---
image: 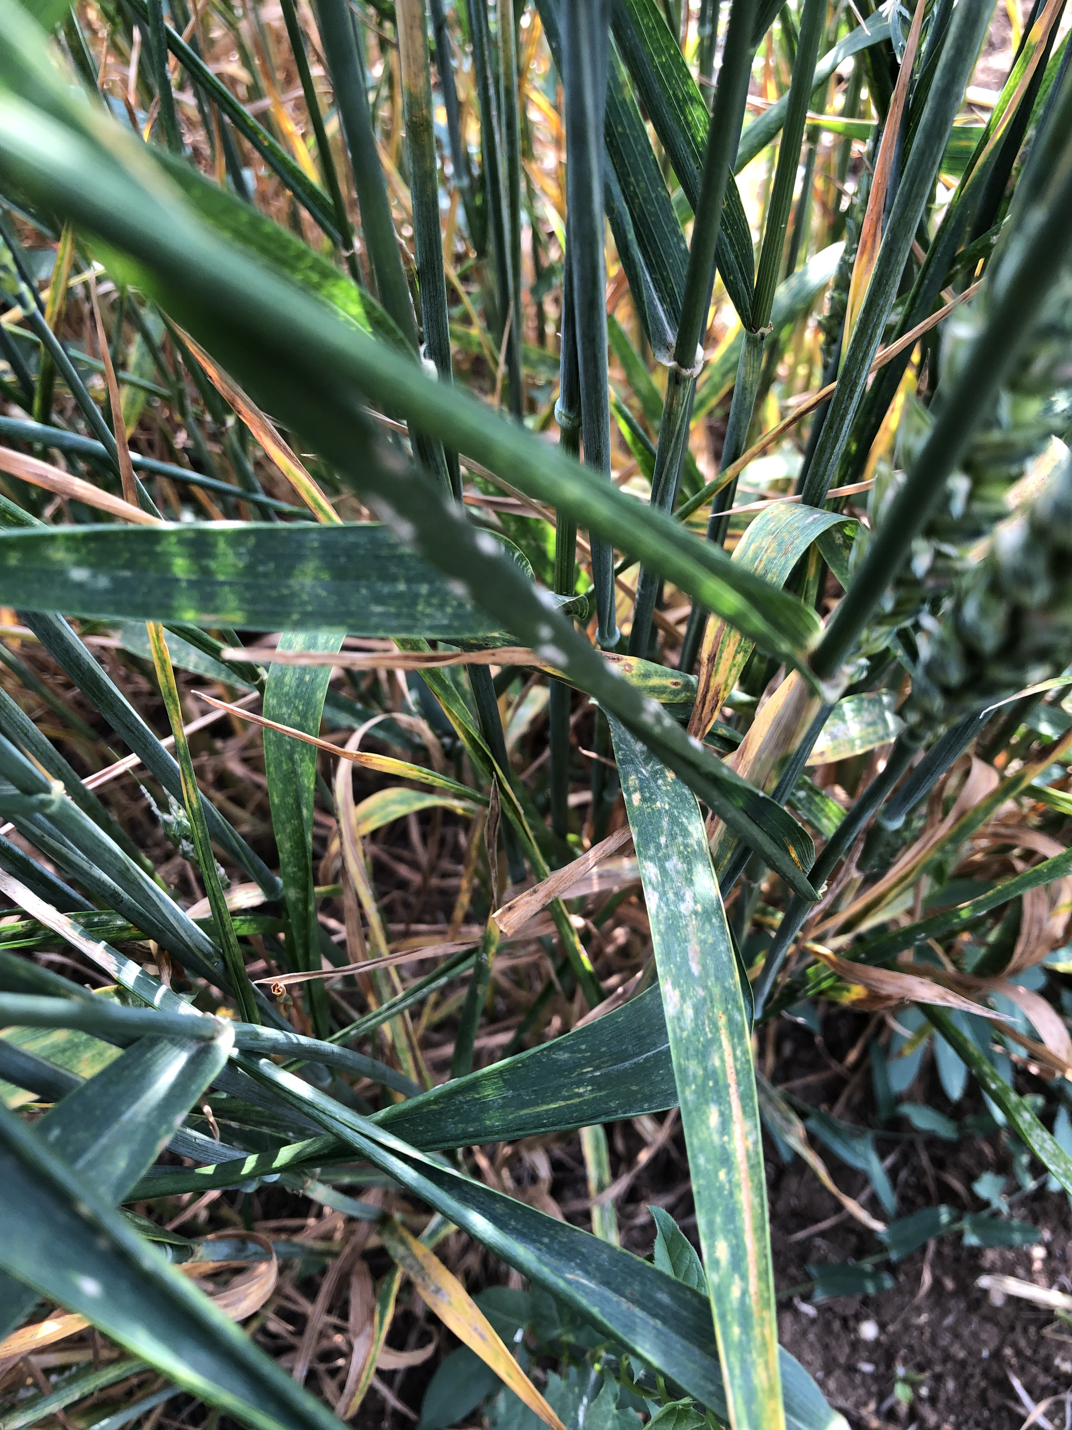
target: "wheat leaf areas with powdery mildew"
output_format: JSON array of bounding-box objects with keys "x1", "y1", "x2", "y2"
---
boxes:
[
  {"x1": 589, "y1": 710, "x2": 815, "y2": 1430},
  {"x1": 47, "y1": 1185, "x2": 128, "y2": 1348},
  {"x1": 12, "y1": 533, "x2": 185, "y2": 645},
  {"x1": 343, "y1": 426, "x2": 723, "y2": 819},
  {"x1": 333, "y1": 535, "x2": 500, "y2": 663}
]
